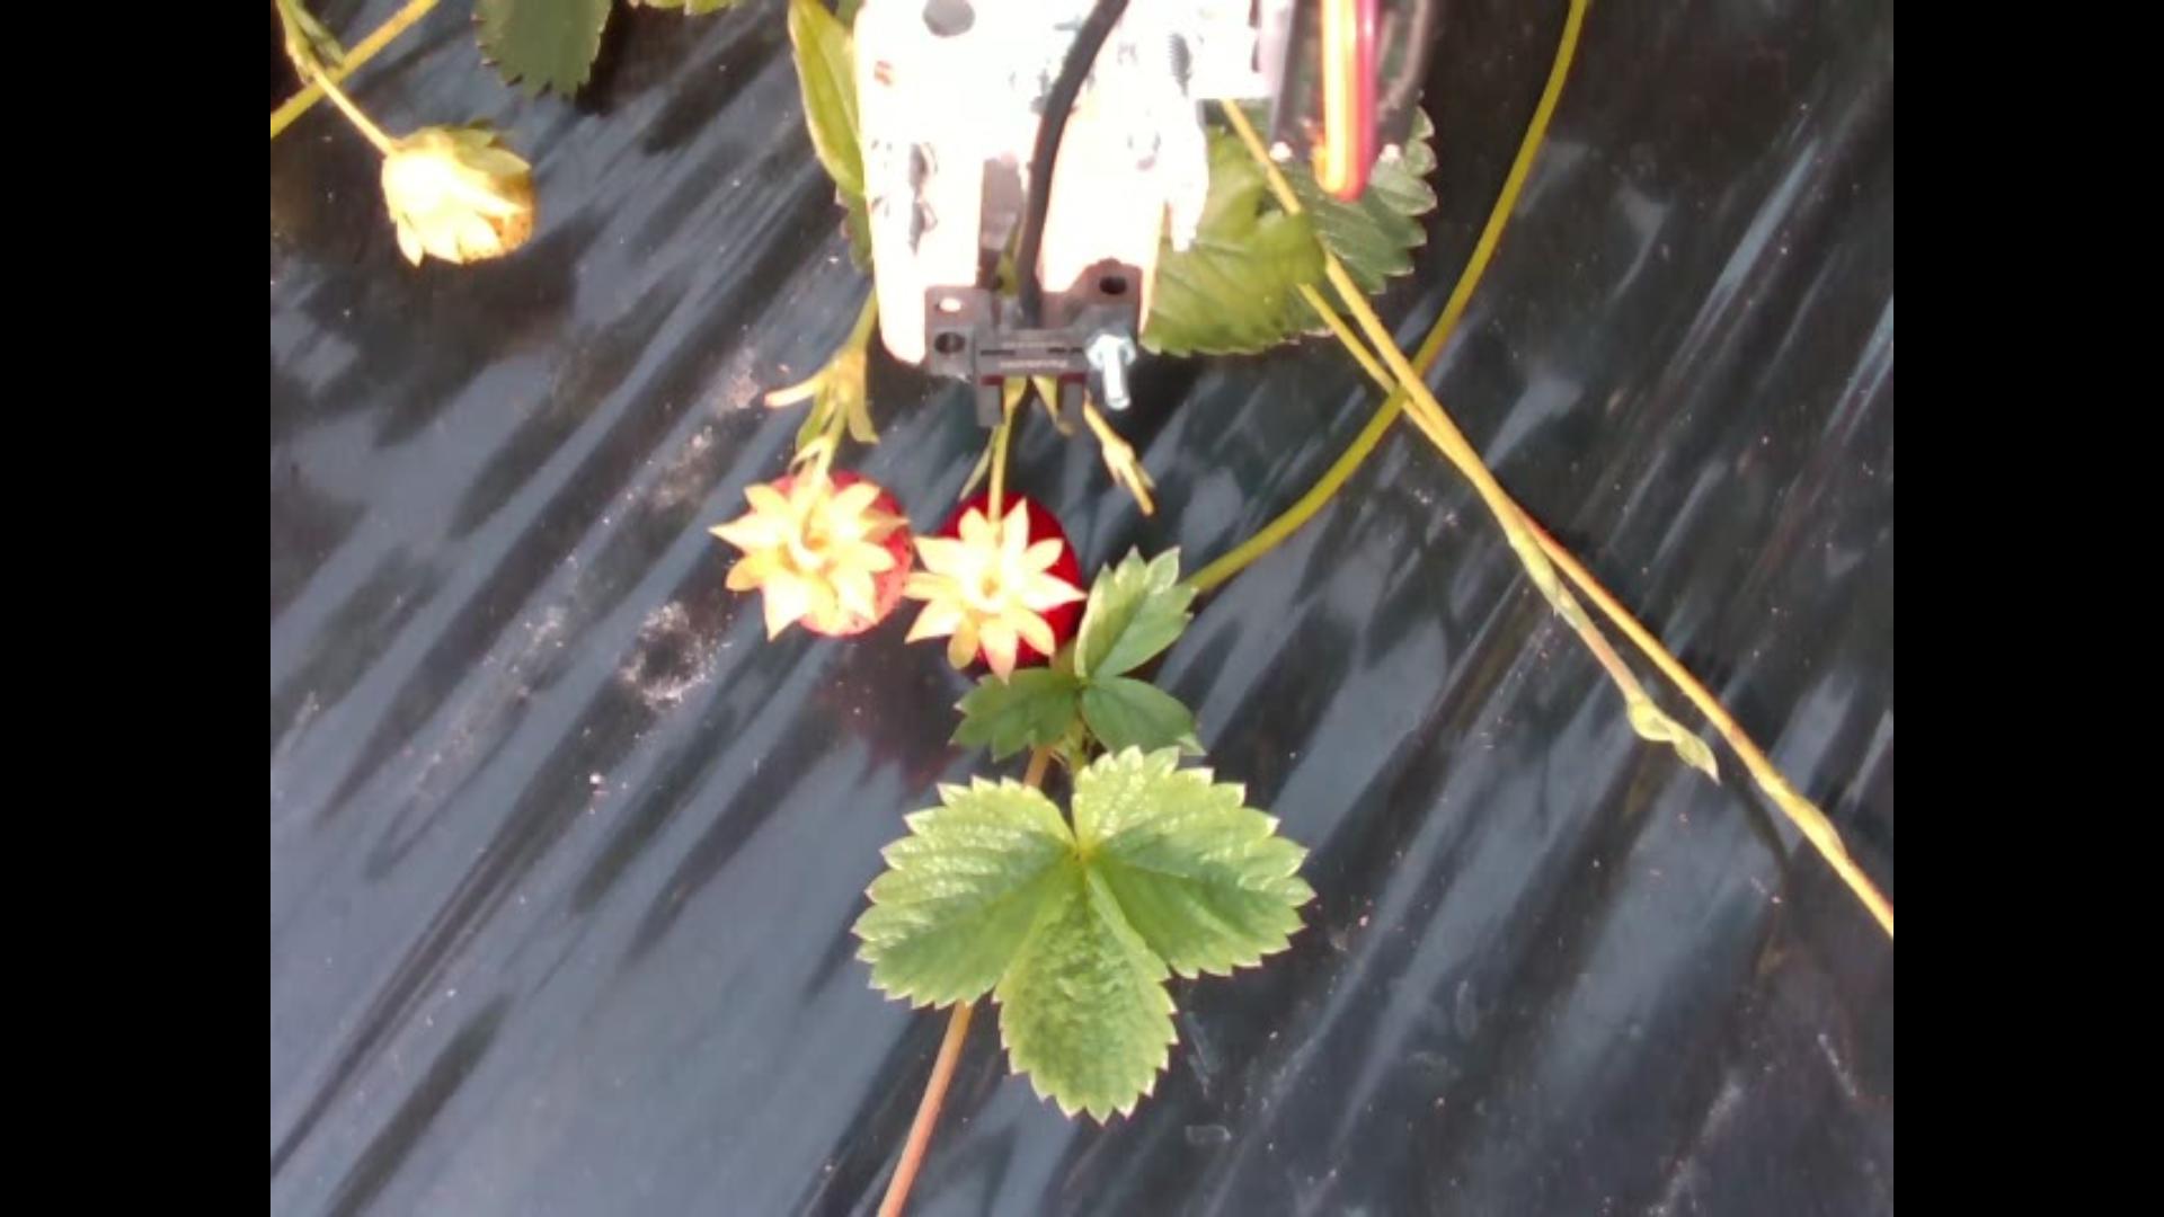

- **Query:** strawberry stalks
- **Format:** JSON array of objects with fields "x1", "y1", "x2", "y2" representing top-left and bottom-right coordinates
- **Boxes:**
[
  {"x1": 780, "y1": 398, "x2": 868, "y2": 561},
  {"x1": 972, "y1": 412, "x2": 1026, "y2": 605},
  {"x1": 328, "y1": 74, "x2": 428, "y2": 181}
]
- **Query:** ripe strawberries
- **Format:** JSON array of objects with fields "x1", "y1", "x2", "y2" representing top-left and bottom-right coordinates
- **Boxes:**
[
  {"x1": 741, "y1": 450, "x2": 910, "y2": 653},
  {"x1": 907, "y1": 490, "x2": 1085, "y2": 670}
]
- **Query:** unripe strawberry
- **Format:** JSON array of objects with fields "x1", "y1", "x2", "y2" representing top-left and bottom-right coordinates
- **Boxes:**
[{"x1": 369, "y1": 125, "x2": 538, "y2": 264}]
